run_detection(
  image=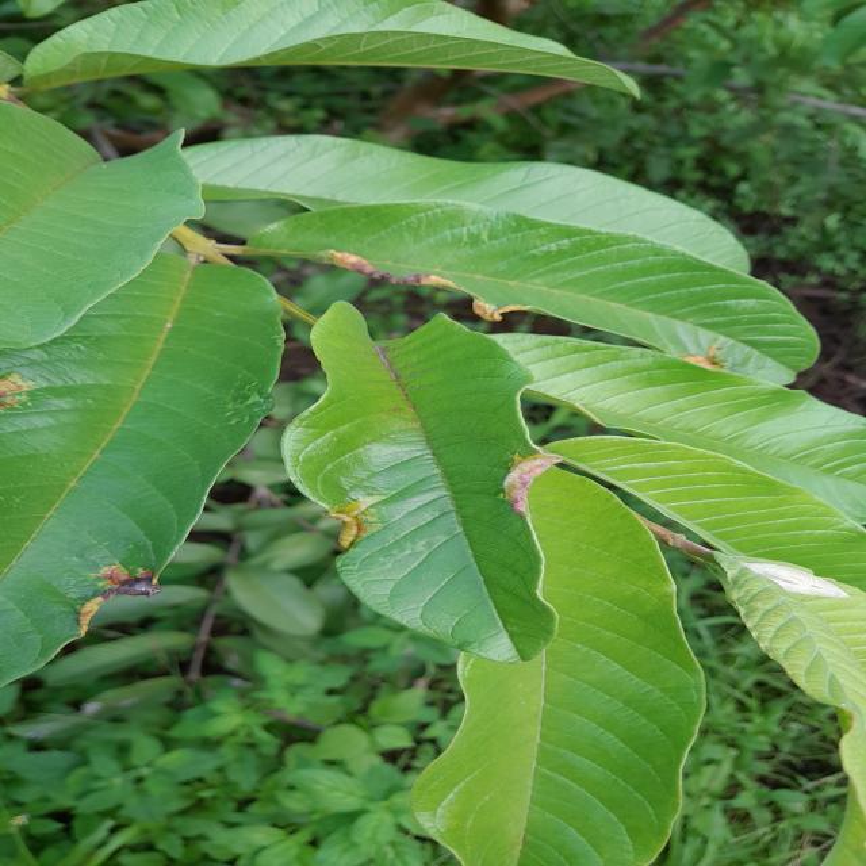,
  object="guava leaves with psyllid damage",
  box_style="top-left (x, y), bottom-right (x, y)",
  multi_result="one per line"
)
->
top-left (216, 191), bottom-right (856, 403)
top-left (256, 314), bottom-right (606, 668)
